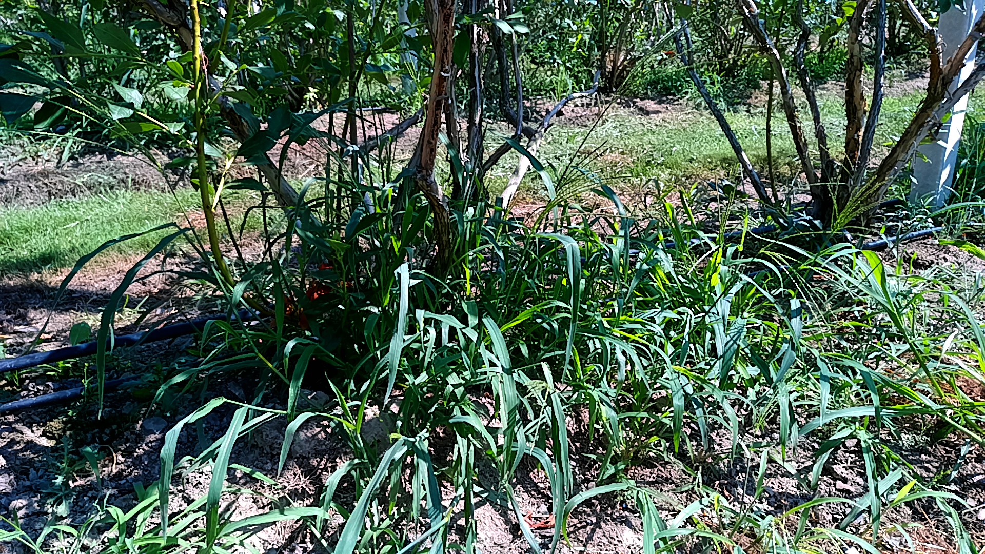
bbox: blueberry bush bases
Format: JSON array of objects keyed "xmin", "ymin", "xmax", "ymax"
[
  {"xmin": 729, "ymin": 102, "xmax": 927, "ymax": 300},
  {"xmin": 191, "ymin": 118, "xmax": 531, "ymax": 407}
]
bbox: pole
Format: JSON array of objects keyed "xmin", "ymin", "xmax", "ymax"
[{"xmin": 907, "ymin": 2, "xmax": 984, "ymax": 222}]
